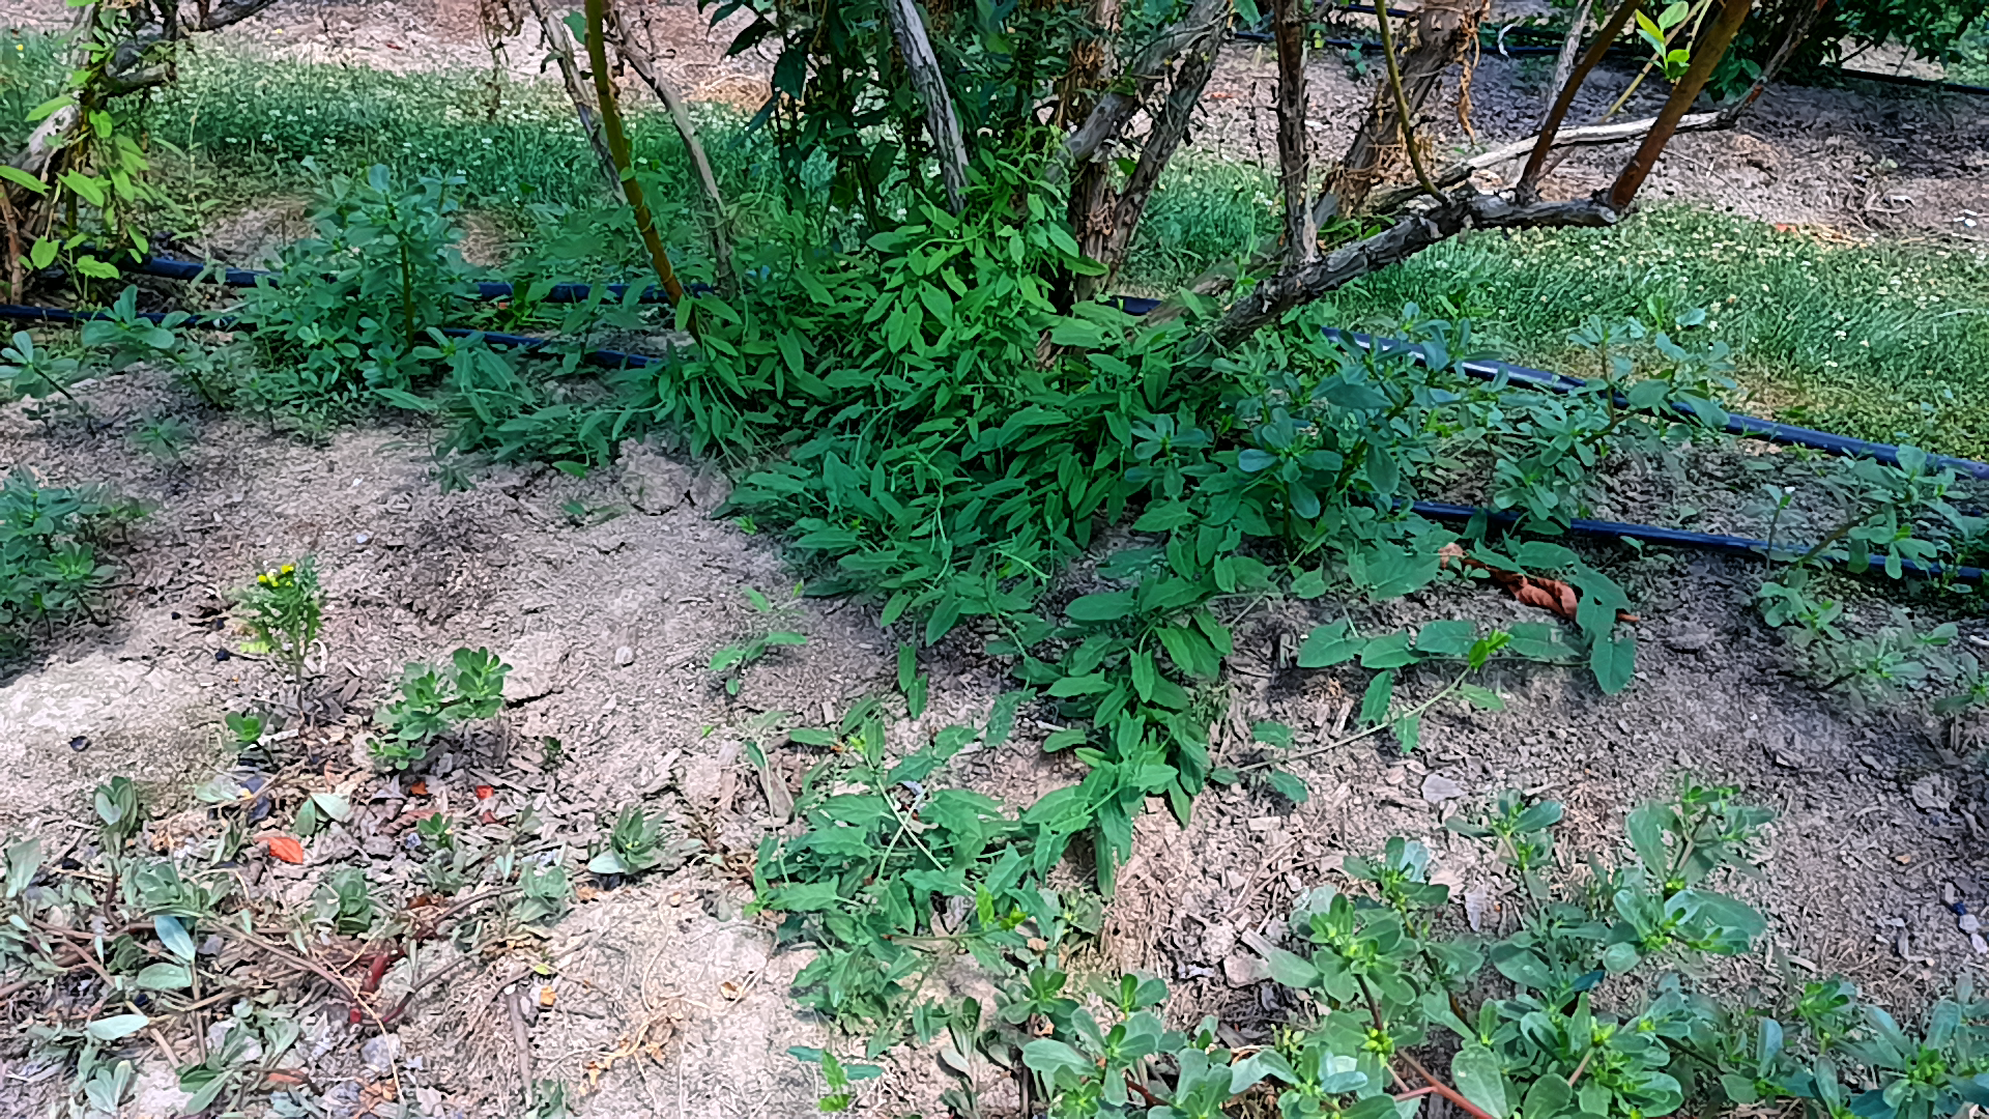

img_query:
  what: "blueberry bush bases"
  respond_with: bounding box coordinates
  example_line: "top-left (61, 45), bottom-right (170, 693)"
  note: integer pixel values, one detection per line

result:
top-left (616, 144), bottom-right (1386, 589)
top-left (0, 65), bottom-right (205, 363)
